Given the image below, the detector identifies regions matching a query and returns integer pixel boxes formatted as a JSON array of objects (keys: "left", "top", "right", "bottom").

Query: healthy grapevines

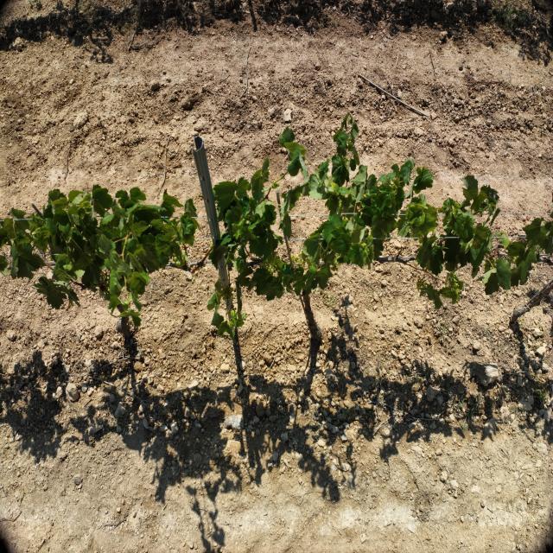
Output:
[
  {"left": 195, "top": 126, "right": 497, "bottom": 363},
  {"left": 0, "top": 173, "right": 202, "bottom": 365}
]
